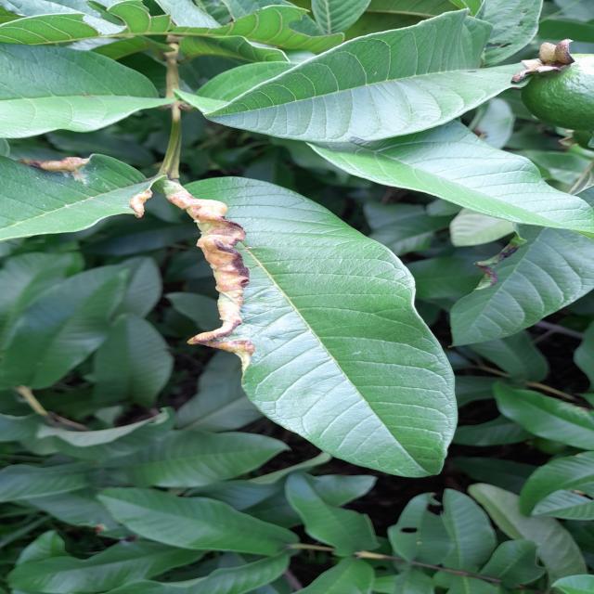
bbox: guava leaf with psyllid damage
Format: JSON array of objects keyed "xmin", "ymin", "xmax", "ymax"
[{"xmin": 140, "ymin": 161, "xmax": 498, "ymax": 516}]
